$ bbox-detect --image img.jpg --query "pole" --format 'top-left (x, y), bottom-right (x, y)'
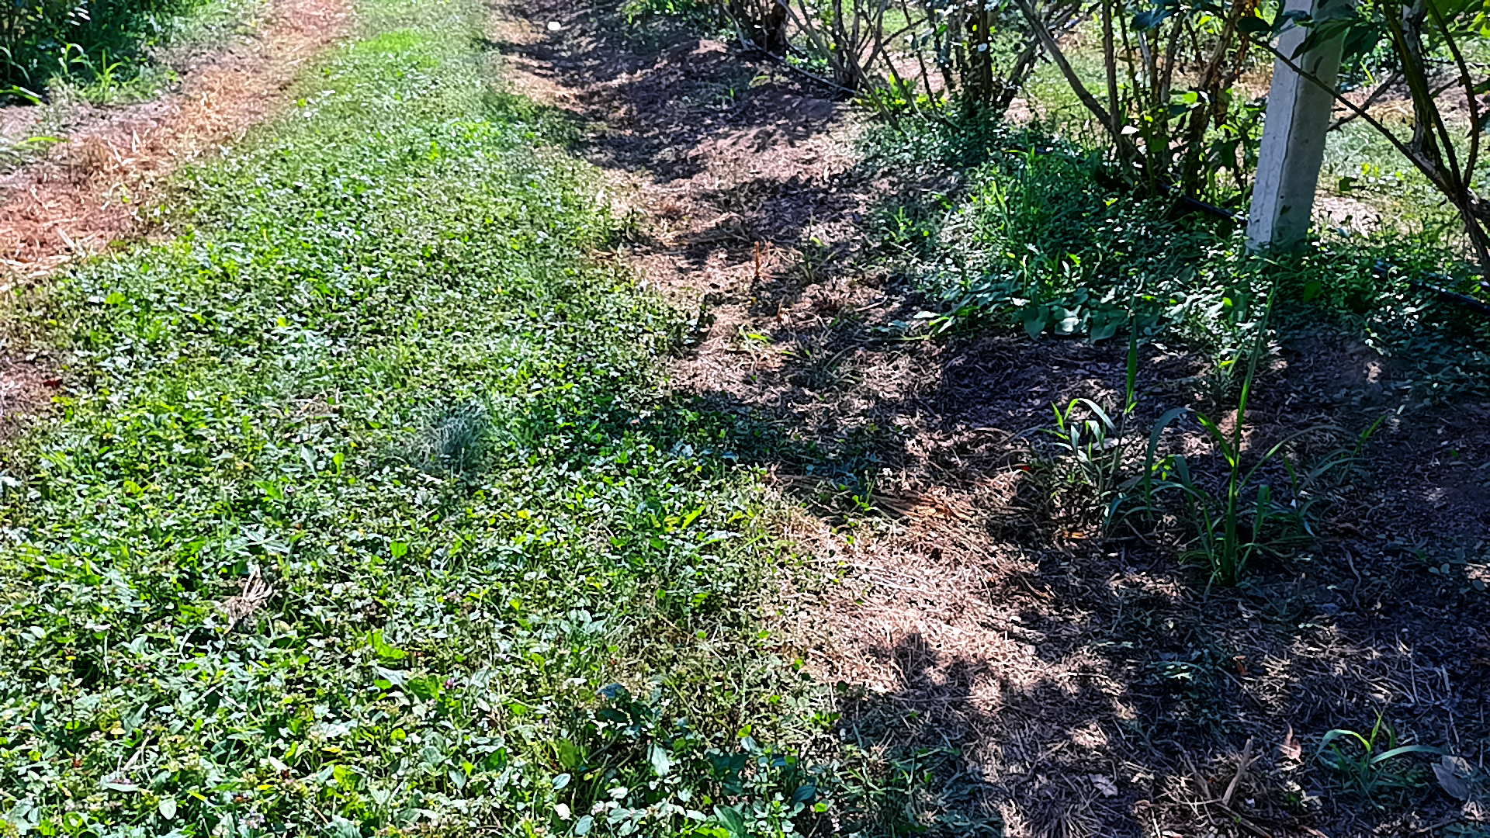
top-left (1244, 1), bottom-right (1353, 307)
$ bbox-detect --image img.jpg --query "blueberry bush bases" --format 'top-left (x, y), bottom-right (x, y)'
top-left (898, 2), bottom-right (1062, 184)
top-left (1067, 3), bottom-right (1241, 250)
top-left (718, 1), bottom-right (792, 79)
top-left (1384, 3), bottom-right (1489, 369)
top-left (795, 1), bottom-right (893, 117)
